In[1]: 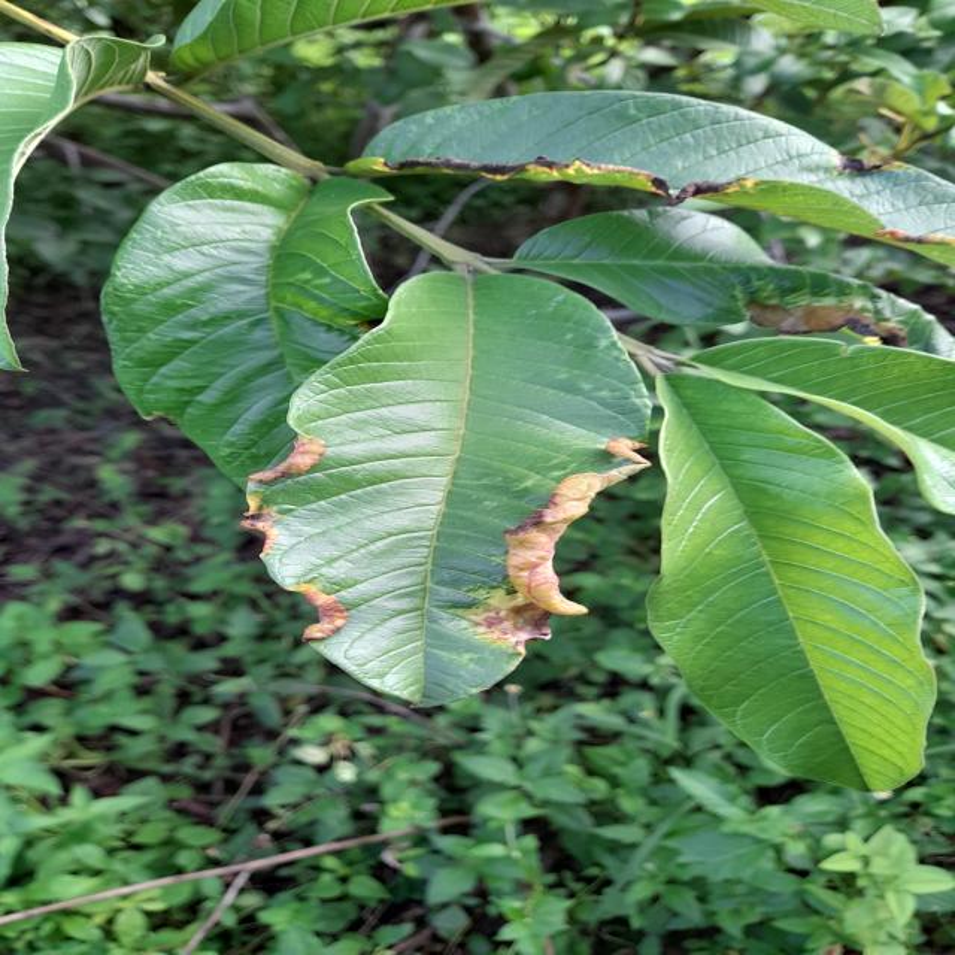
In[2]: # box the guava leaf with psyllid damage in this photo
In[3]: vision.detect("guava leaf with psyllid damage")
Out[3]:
[239,254,668,729]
